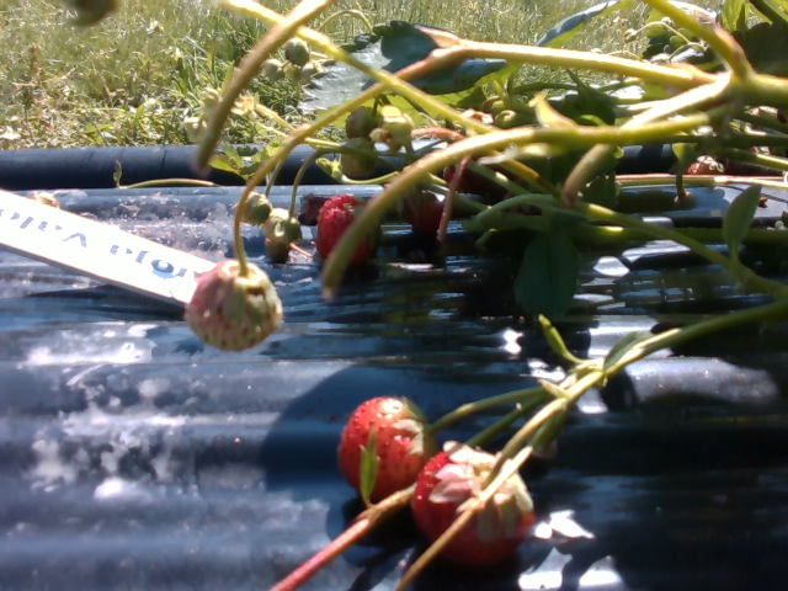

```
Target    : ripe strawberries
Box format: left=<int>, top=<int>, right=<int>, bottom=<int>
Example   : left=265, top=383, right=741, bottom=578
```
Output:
left=331, top=400, right=430, bottom=501
left=310, top=199, right=382, bottom=263
left=420, top=455, right=540, bottom=551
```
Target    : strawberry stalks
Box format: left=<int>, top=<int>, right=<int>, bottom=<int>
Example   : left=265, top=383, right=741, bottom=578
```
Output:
left=464, top=432, right=526, bottom=498
left=408, top=395, right=506, bottom=441
left=233, top=192, right=259, bottom=290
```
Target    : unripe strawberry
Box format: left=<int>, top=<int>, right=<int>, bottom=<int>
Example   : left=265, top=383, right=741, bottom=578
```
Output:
left=188, top=271, right=282, bottom=348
